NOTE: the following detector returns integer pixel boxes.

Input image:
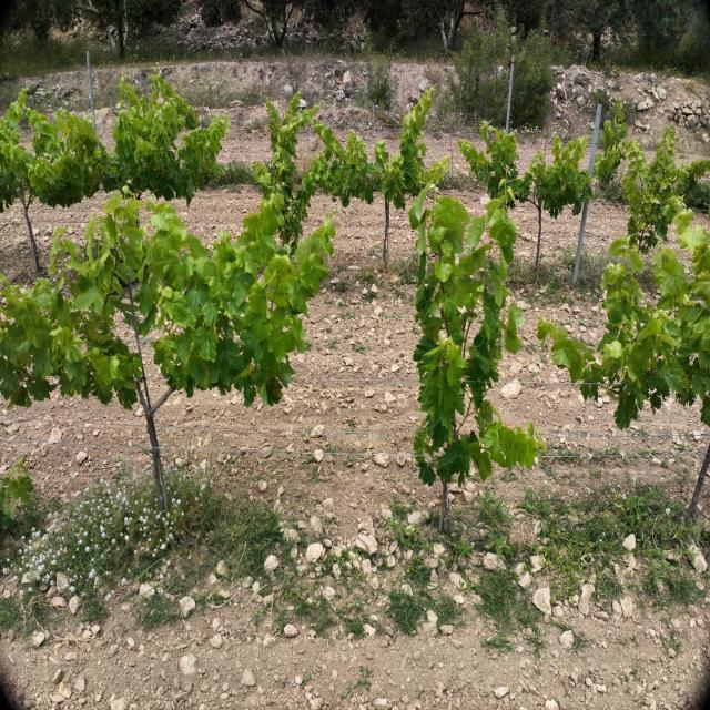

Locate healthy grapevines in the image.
[0,192,348,535]
[398,187,539,540]
[537,214,710,544]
